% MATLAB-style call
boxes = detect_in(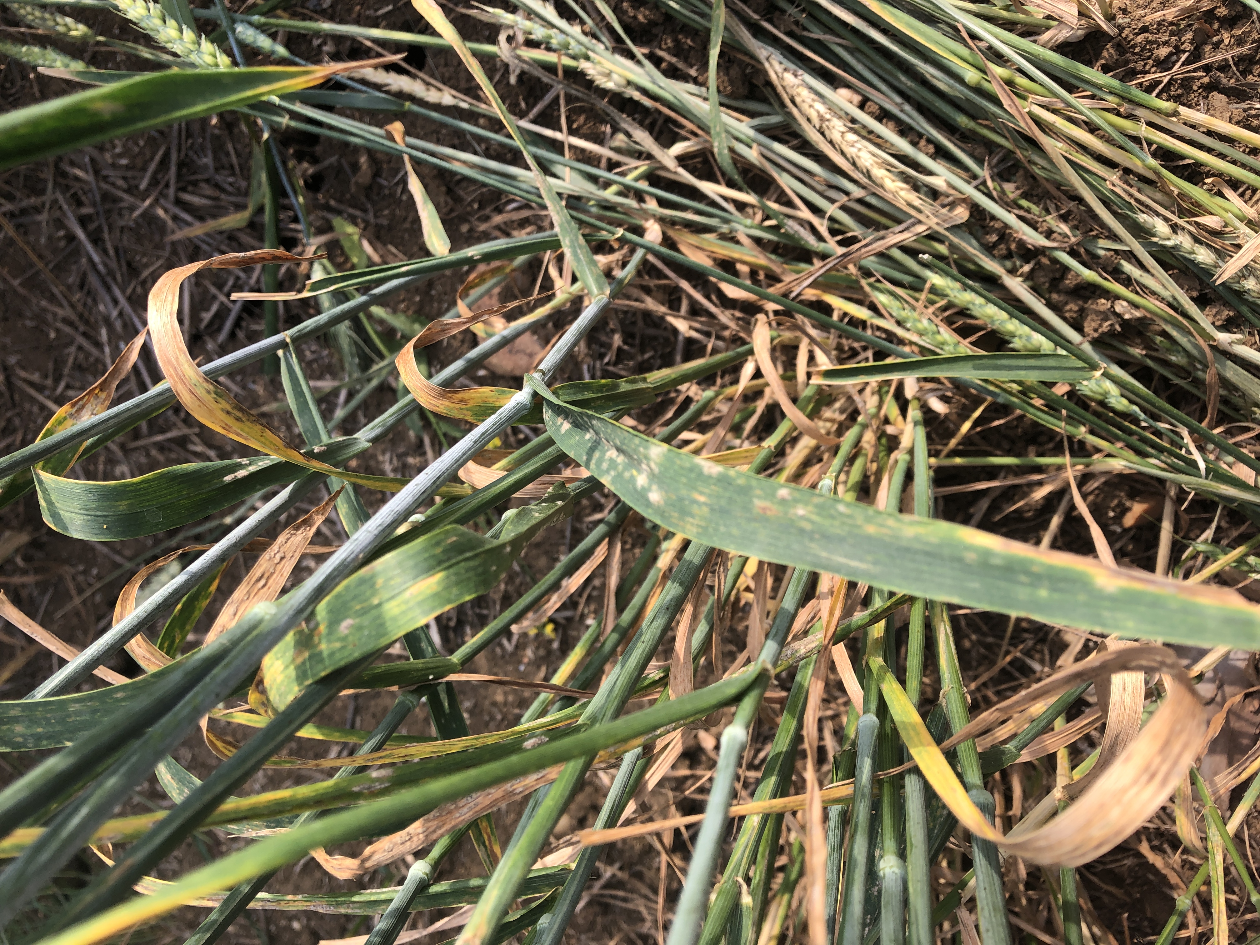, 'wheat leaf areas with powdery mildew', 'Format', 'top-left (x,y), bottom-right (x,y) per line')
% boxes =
(294, 594), (388, 679)
(565, 395), (916, 560)
(0, 679), (101, 780)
